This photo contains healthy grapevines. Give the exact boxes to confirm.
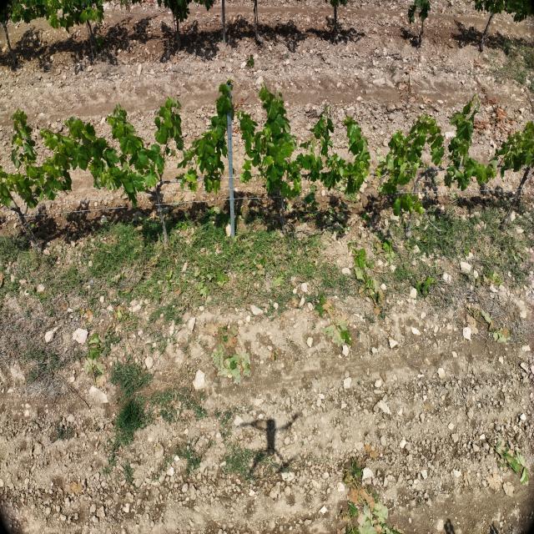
[0,106,66,257]
[492,111,534,219]
[236,87,371,251]
[373,94,490,243]
[64,81,232,258]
